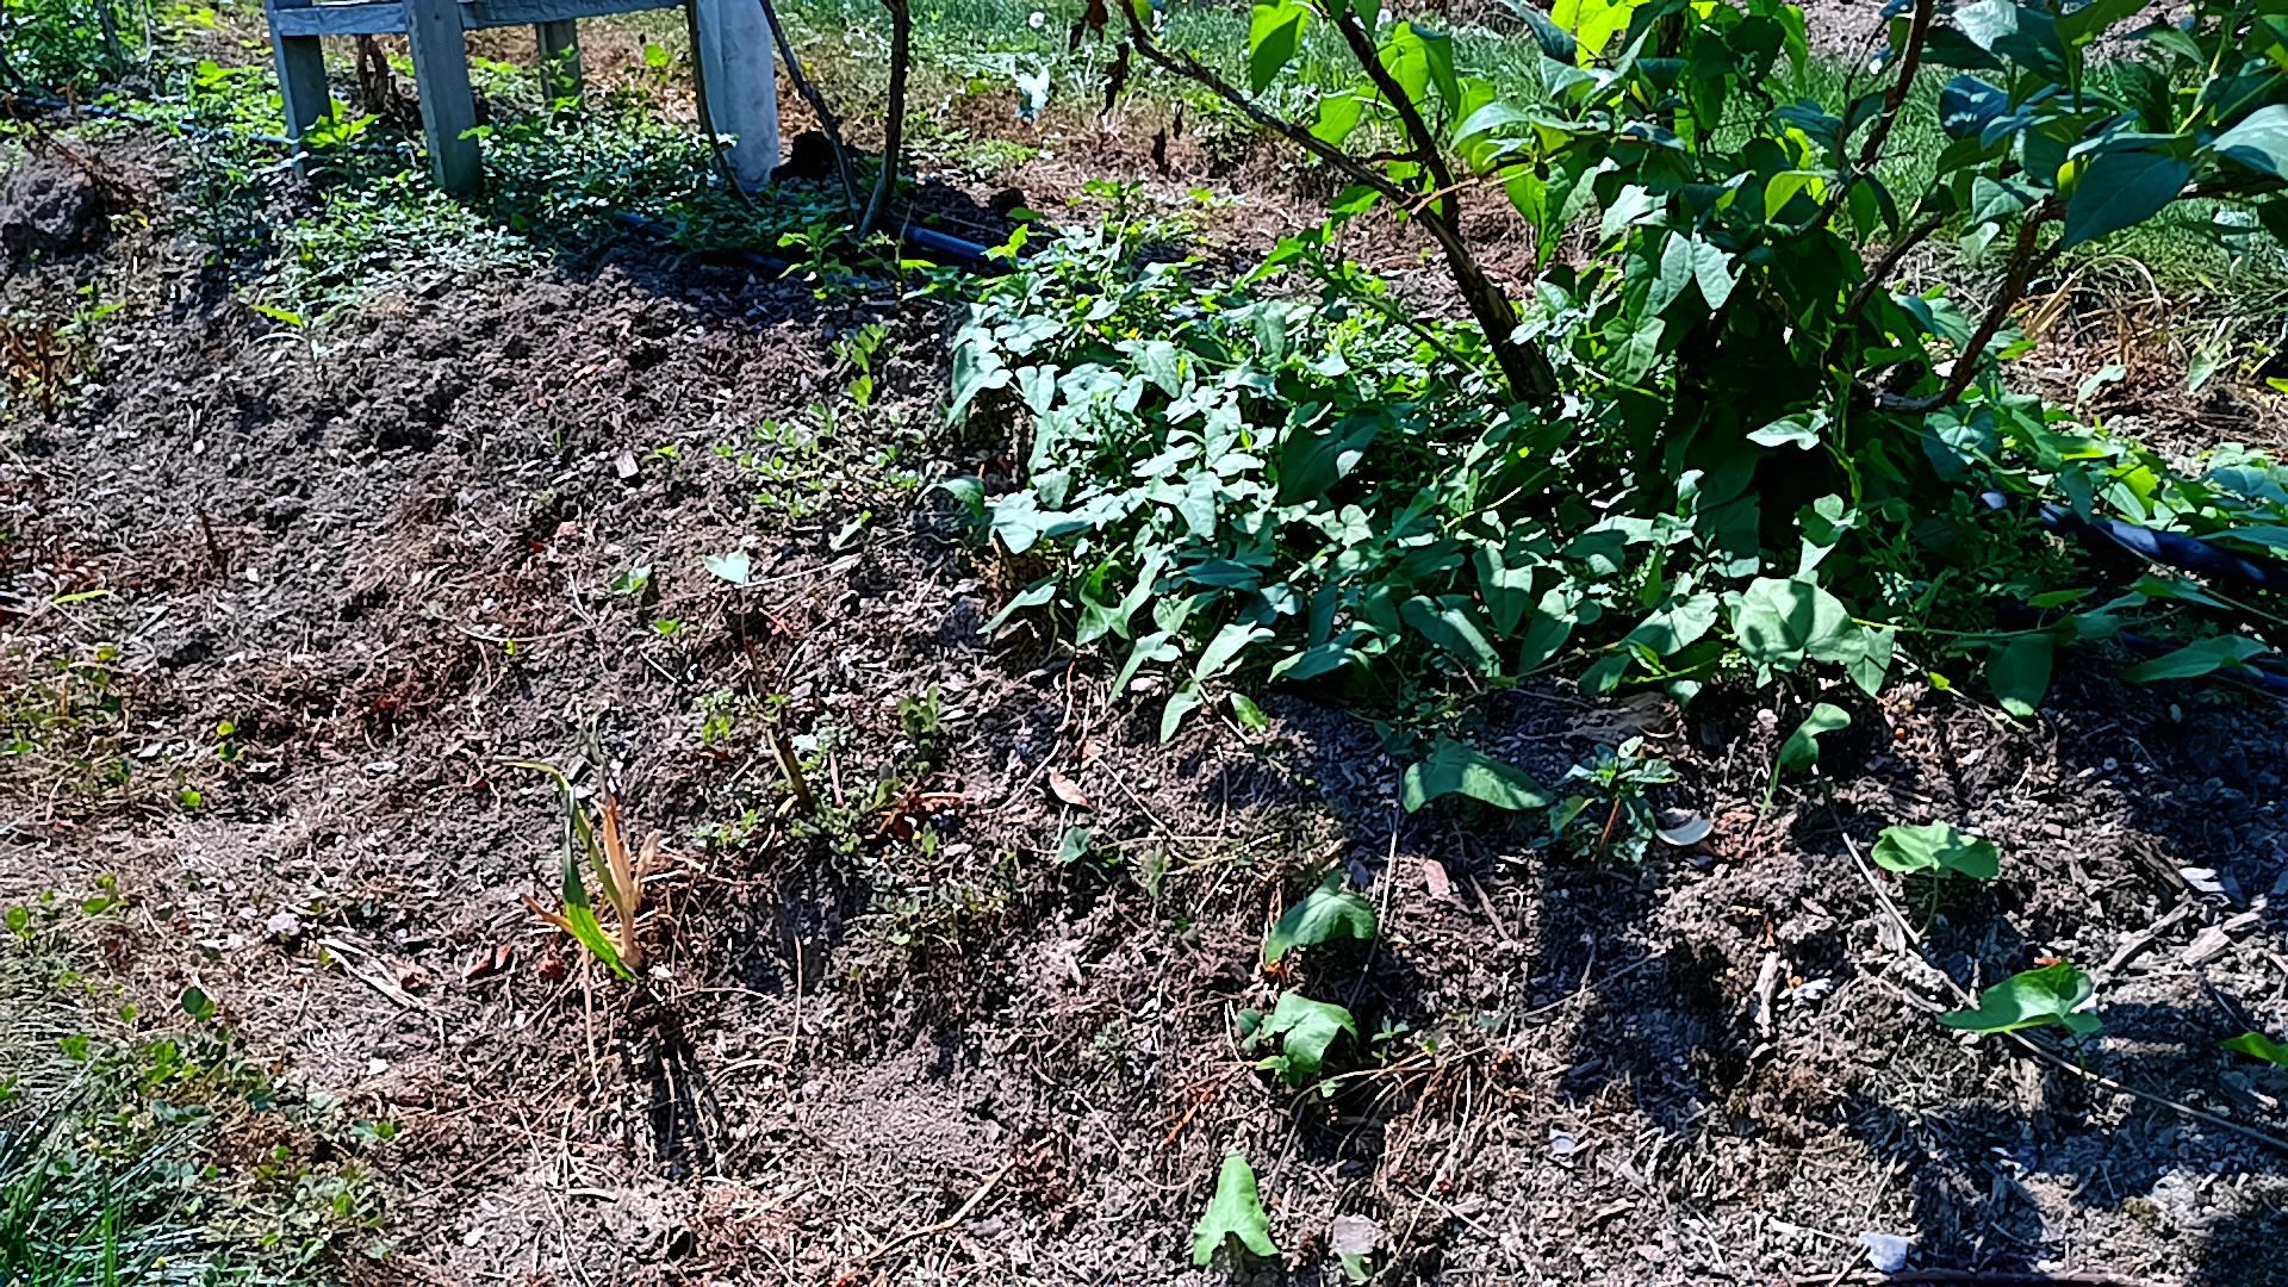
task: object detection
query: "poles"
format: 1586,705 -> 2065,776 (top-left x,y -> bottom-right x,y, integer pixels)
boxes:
402,3 -> 496,224
265,2 -> 349,219
692,3 -> 789,216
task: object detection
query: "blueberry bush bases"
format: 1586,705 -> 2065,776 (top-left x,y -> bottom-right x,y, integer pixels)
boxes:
797,5 -> 926,277
1168,42 -> 2161,621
